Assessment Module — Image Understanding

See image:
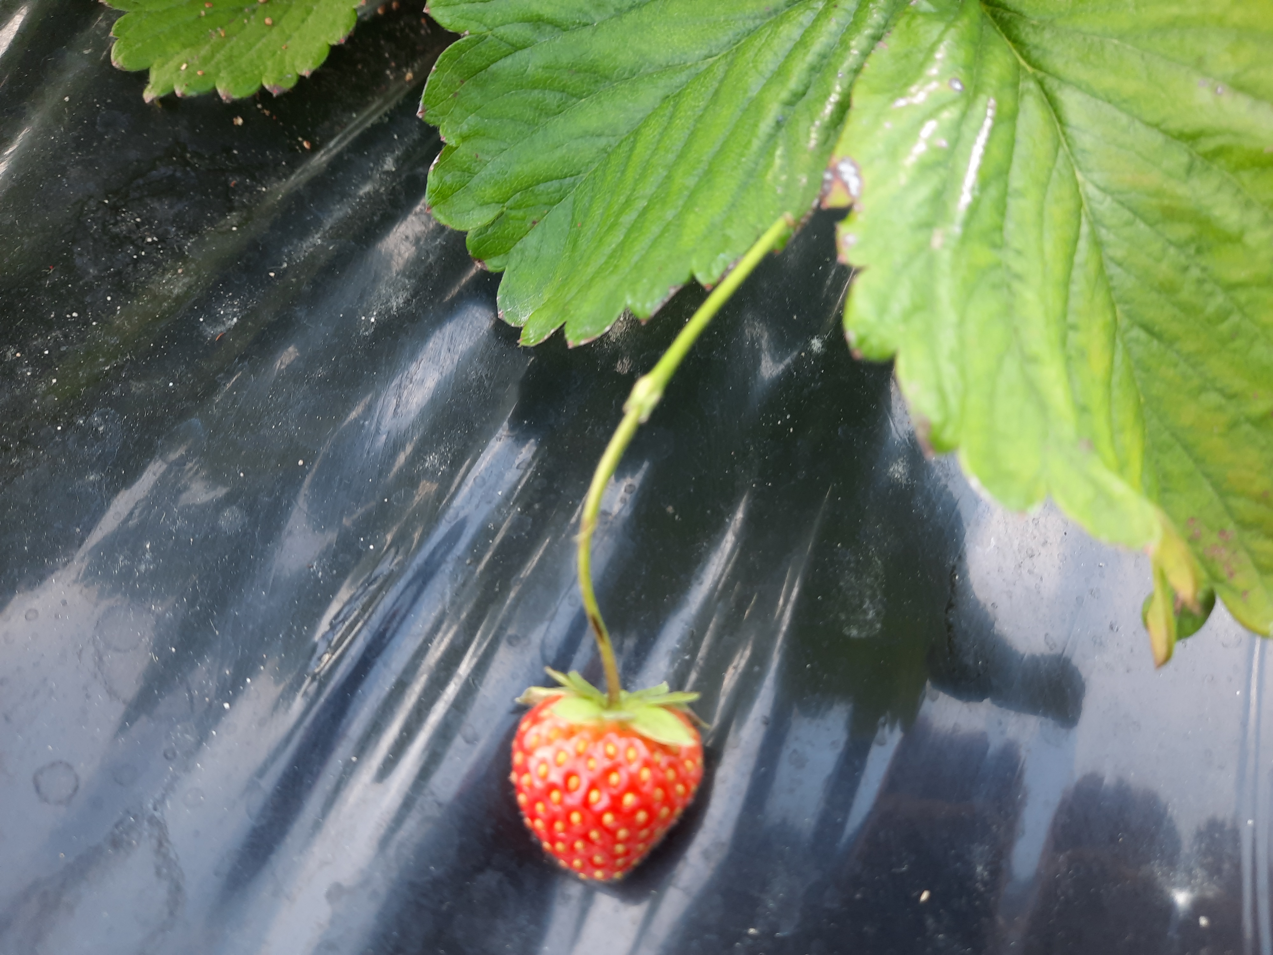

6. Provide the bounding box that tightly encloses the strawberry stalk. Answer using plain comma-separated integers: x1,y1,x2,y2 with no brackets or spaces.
574,404,642,757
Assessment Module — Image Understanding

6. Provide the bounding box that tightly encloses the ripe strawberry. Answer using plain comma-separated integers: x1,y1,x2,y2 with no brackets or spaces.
519,691,705,888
